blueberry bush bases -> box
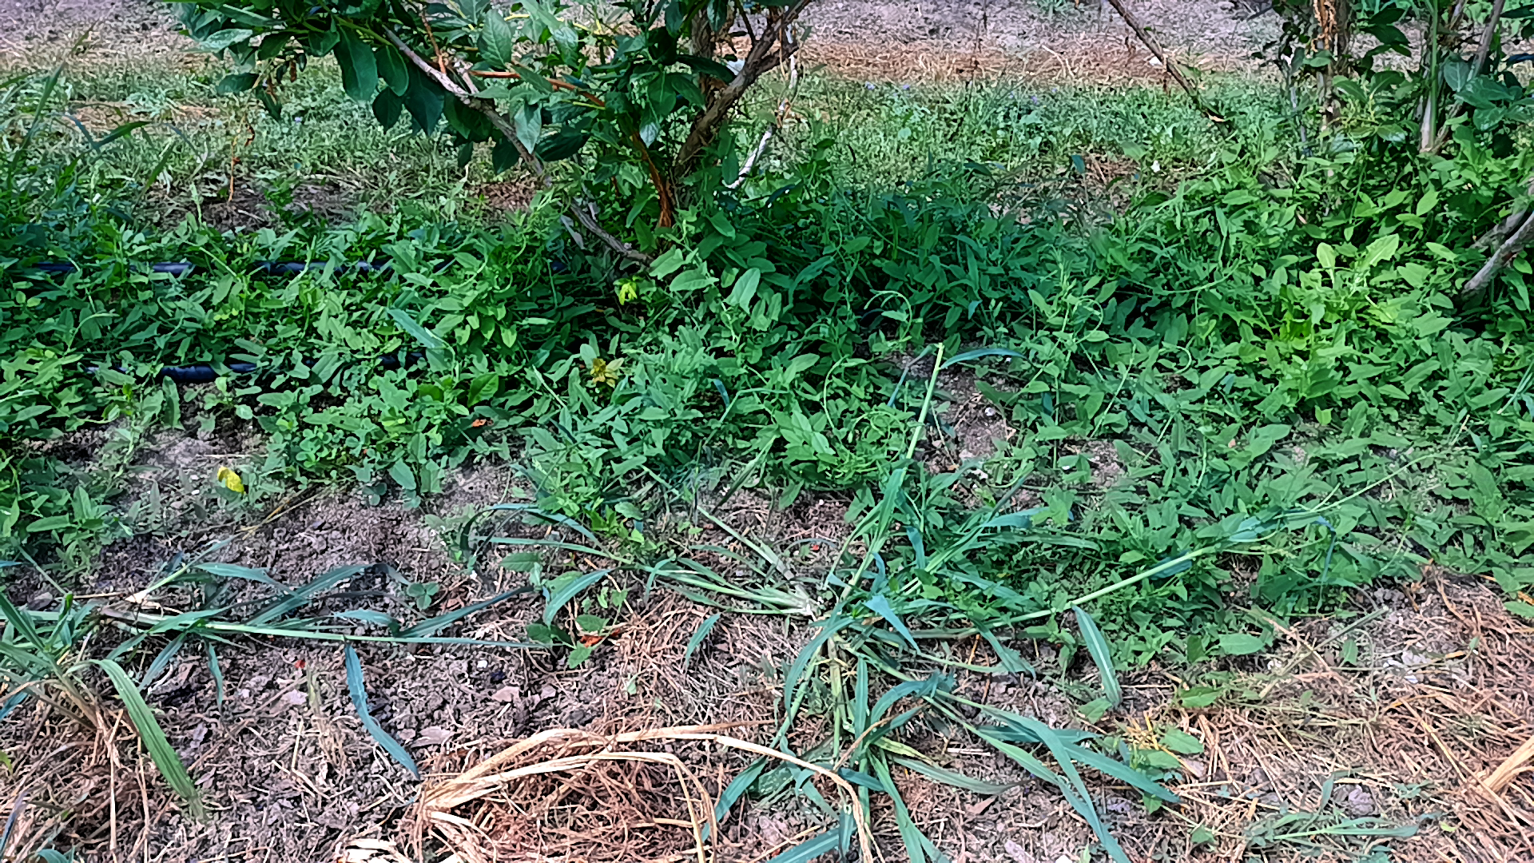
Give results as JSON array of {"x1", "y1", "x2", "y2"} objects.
[
  {"x1": 1219, "y1": 9, "x2": 1534, "y2": 356},
  {"x1": 453, "y1": 79, "x2": 803, "y2": 396}
]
